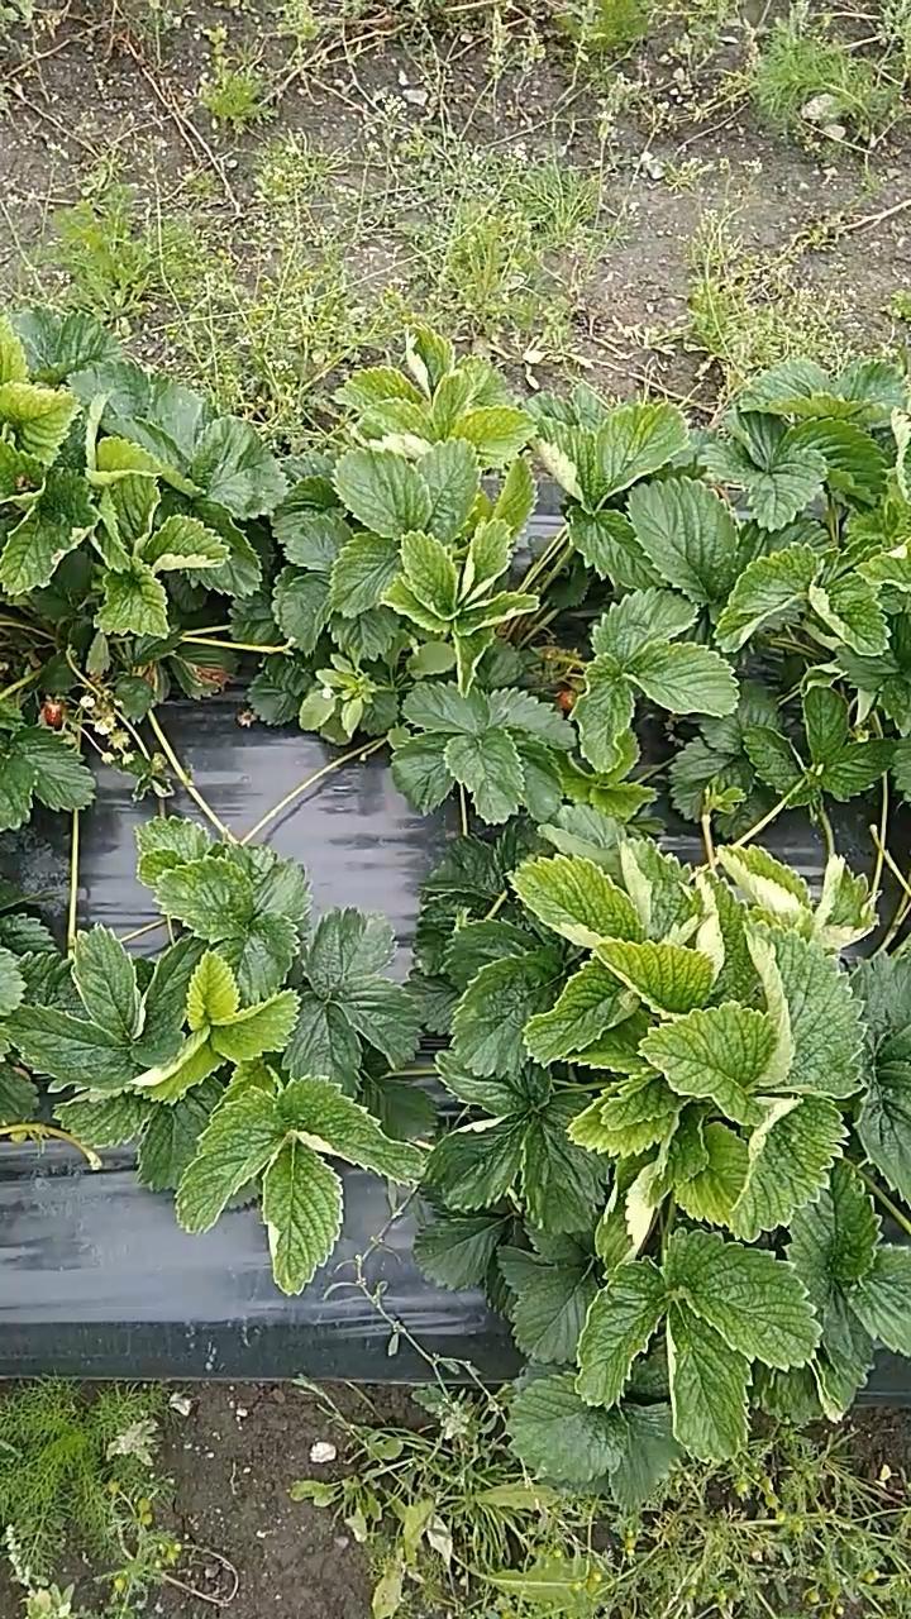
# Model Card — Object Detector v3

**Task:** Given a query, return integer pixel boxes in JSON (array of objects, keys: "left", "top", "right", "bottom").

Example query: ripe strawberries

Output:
[
  {"left": 546, "top": 680, "right": 585, "bottom": 721},
  {"left": 40, "top": 698, "right": 65, "bottom": 727}
]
